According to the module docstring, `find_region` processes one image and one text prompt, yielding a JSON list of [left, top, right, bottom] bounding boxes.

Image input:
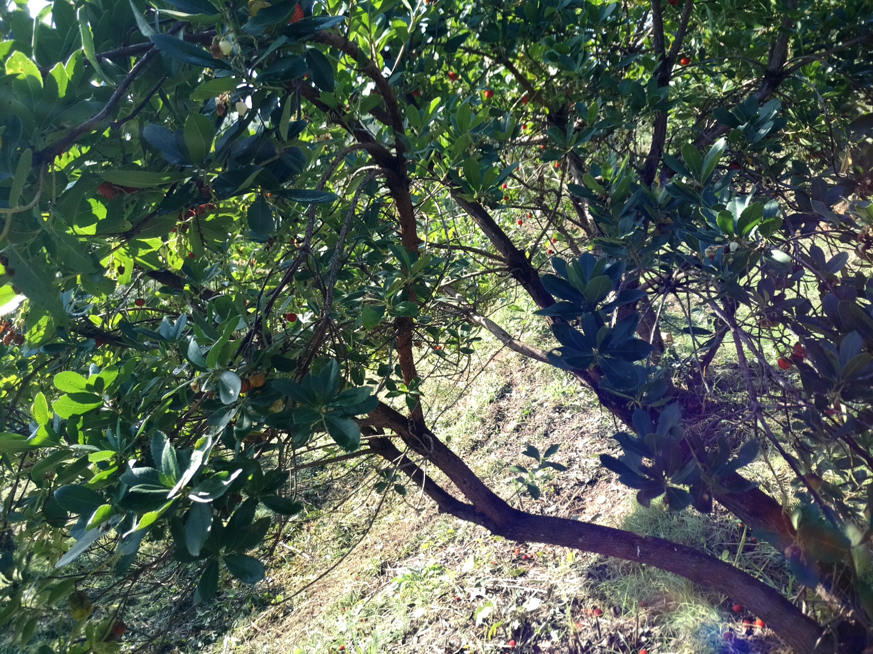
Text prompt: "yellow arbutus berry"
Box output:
[[246, 372, 265, 388]]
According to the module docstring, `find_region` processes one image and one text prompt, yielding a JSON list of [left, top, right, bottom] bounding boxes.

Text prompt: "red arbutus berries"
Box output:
[[134, 298, 145, 307], [448, 70, 457, 80], [197, 200, 215, 219], [790, 354, 805, 365], [551, 238, 557, 243], [287, 313, 296, 322], [555, 163, 561, 168], [540, 145, 546, 149], [522, 123, 527, 129], [504, 197, 508, 201], [409, 87, 422, 97], [95, 339, 103, 347], [503, 183, 506, 188], [96, 180, 118, 203], [237, 377, 251, 393], [680, 57, 690, 64], [518, 220, 523, 225], [484, 88, 494, 97], [547, 249, 553, 255], [178, 210, 196, 223], [777, 357, 791, 369], [521, 95, 529, 104], [793, 340, 808, 358], [527, 213, 533, 218], [286, 3, 307, 23]]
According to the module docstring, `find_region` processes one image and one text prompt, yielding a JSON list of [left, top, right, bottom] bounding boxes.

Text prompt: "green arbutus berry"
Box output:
[[247, 0, 272, 18]]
